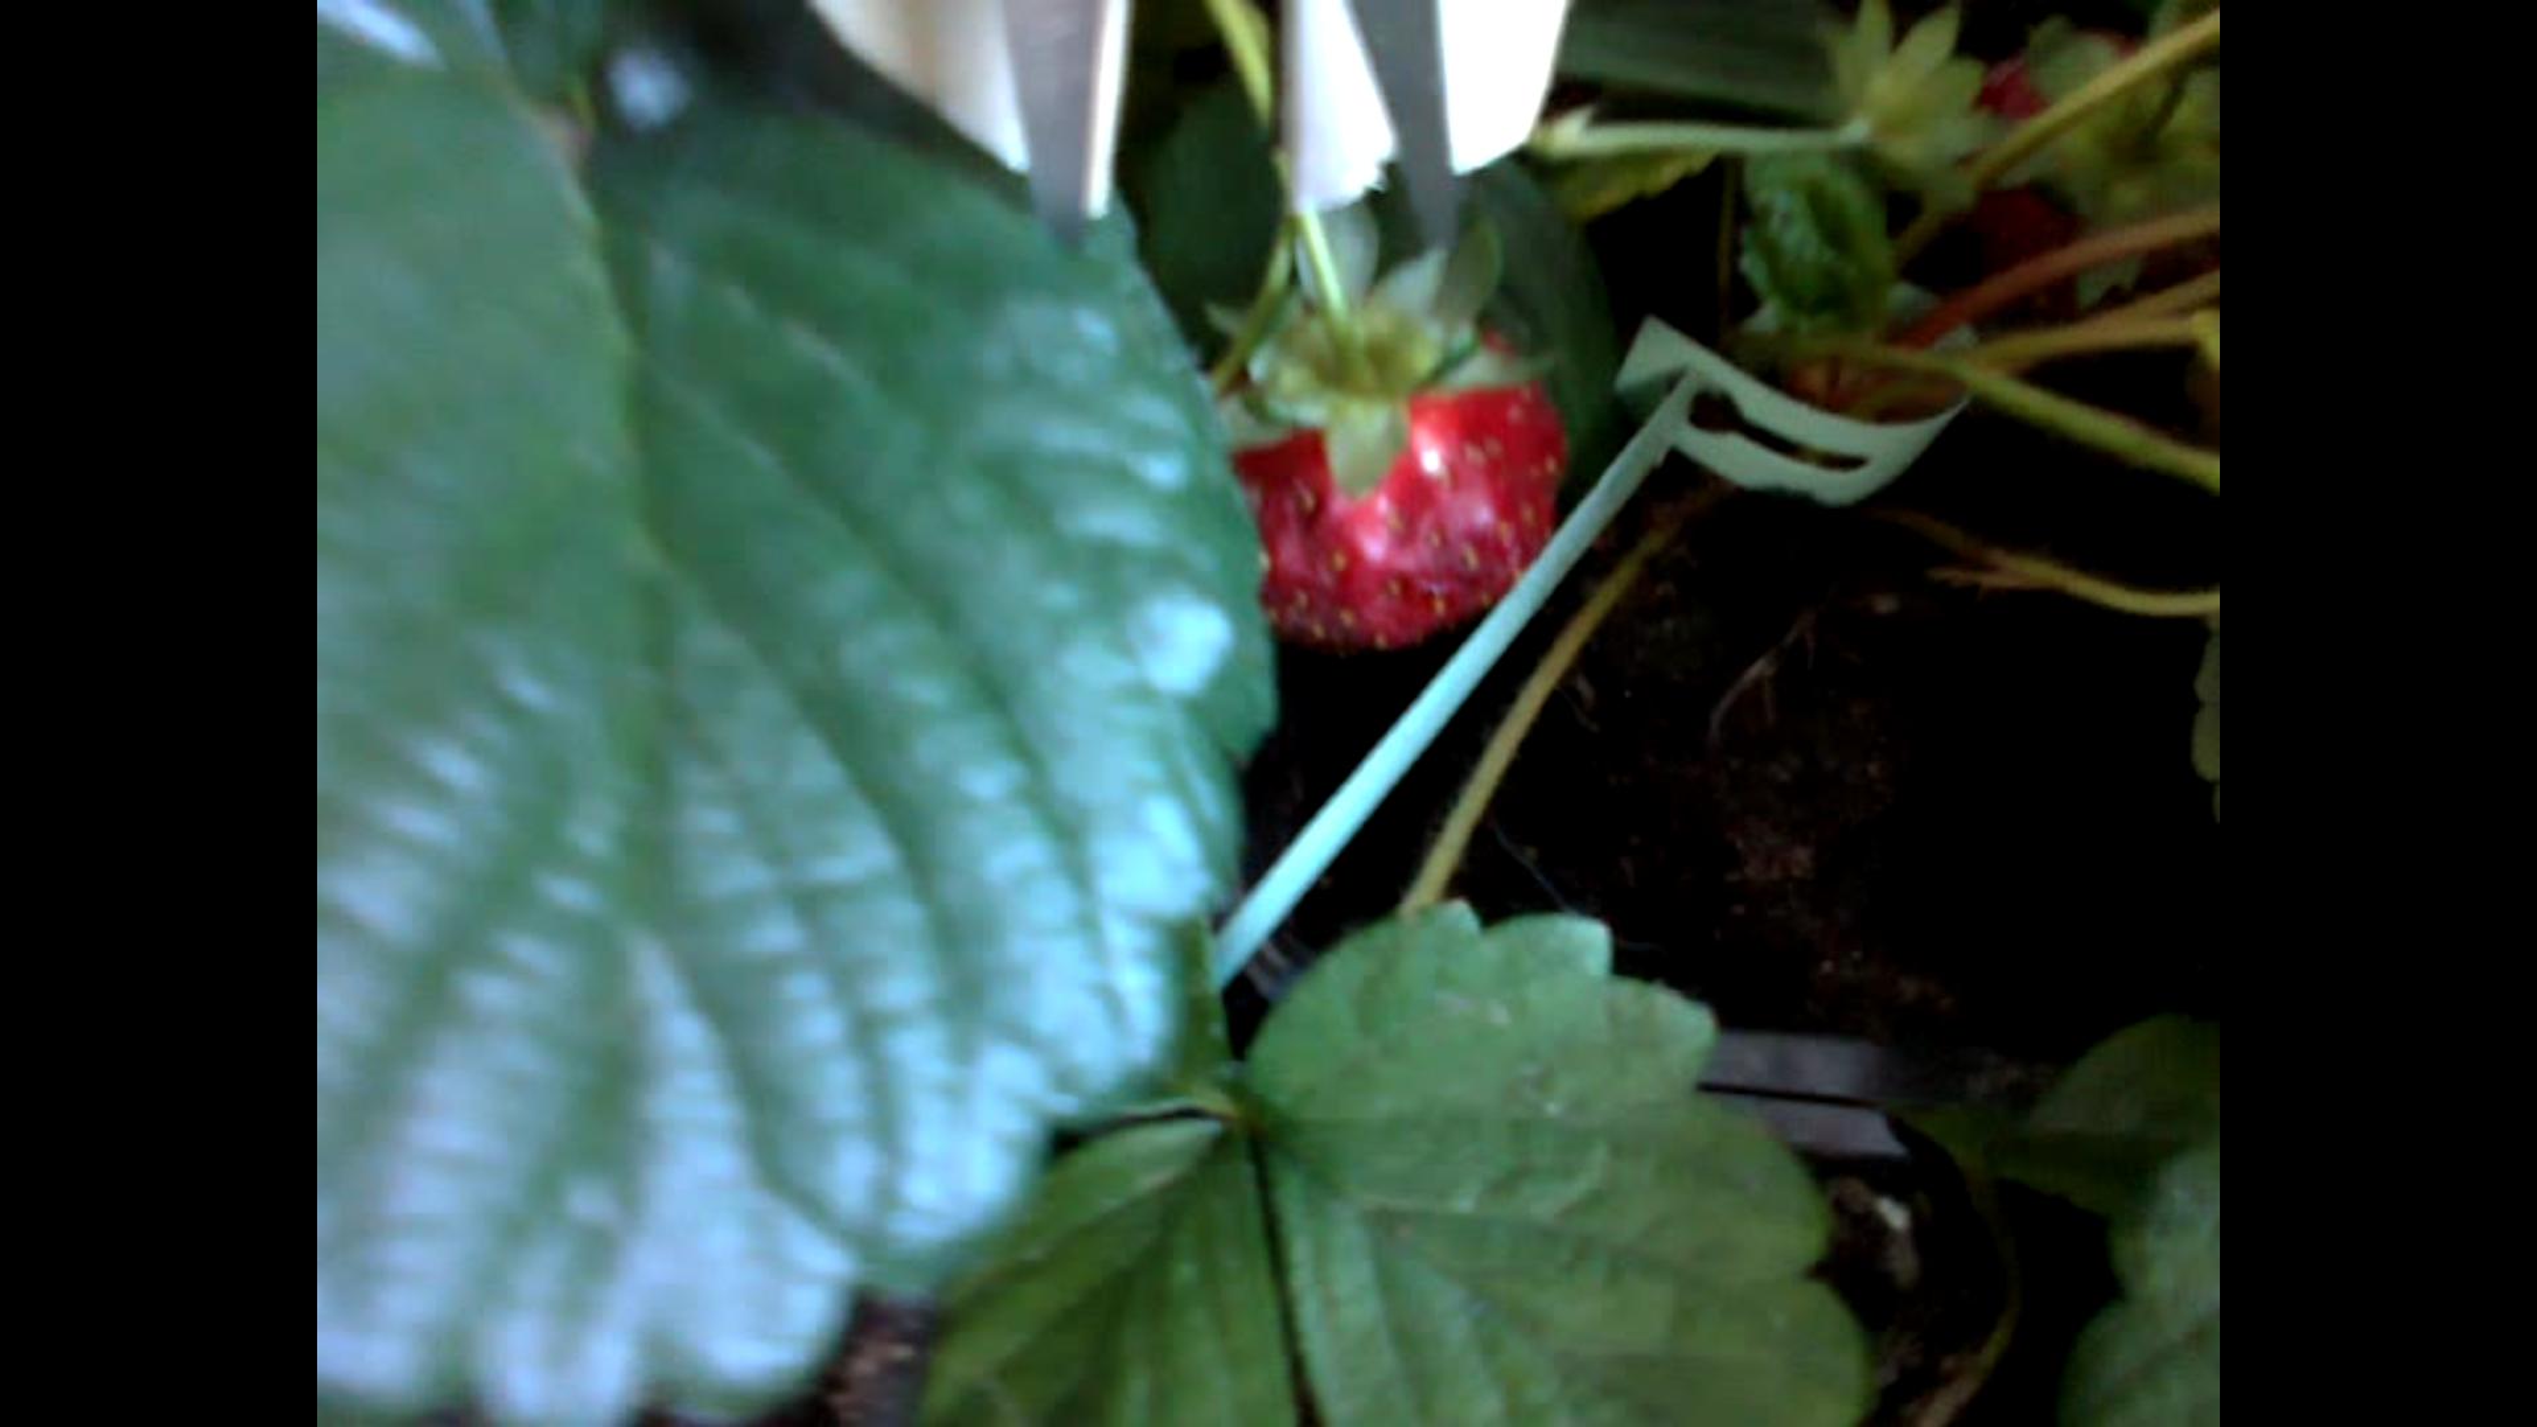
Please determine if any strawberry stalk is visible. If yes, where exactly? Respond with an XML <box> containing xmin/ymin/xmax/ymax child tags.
<box><xmin>1206</xmin><ymin>0</ymin><xmax>1428</xmax><ymax>455</ymax></box>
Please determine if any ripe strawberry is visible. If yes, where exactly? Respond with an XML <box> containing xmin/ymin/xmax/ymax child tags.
<box><xmin>1183</xmin><ymin>322</ymin><xmax>1592</xmax><ymax>665</ymax></box>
